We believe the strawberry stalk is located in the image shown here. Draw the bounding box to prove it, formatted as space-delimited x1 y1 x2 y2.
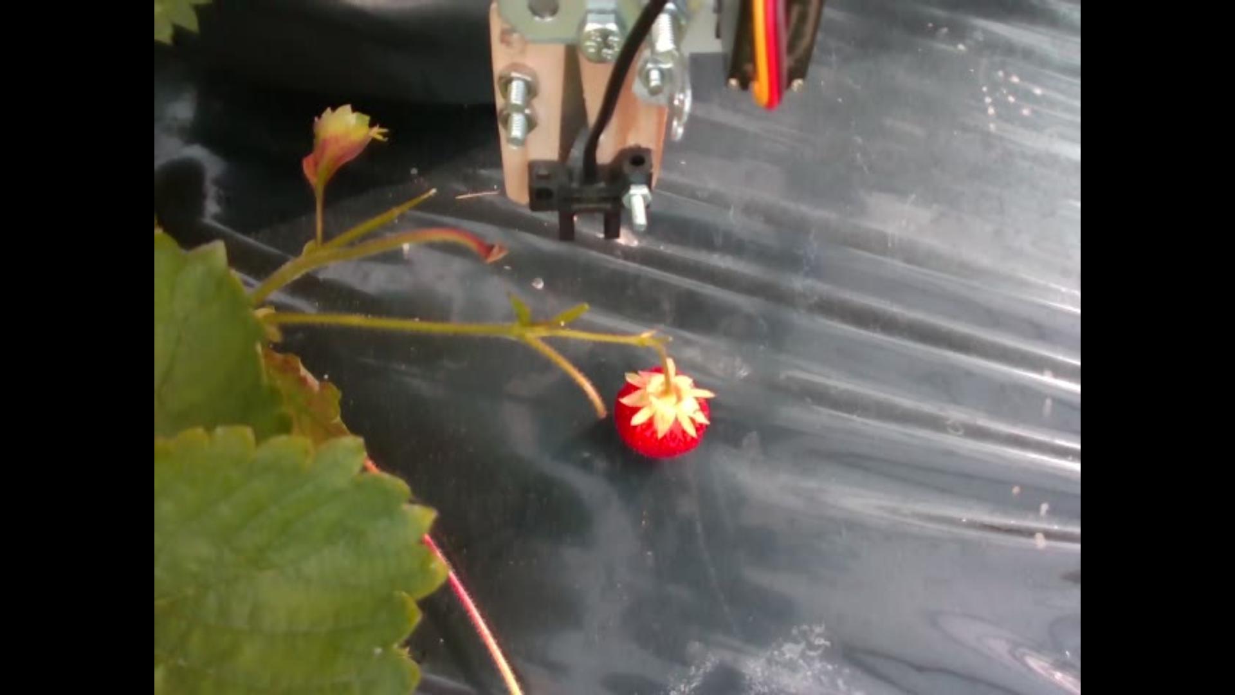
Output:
581 325 683 398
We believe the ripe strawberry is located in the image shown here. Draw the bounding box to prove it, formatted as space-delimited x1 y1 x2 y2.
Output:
595 355 725 464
